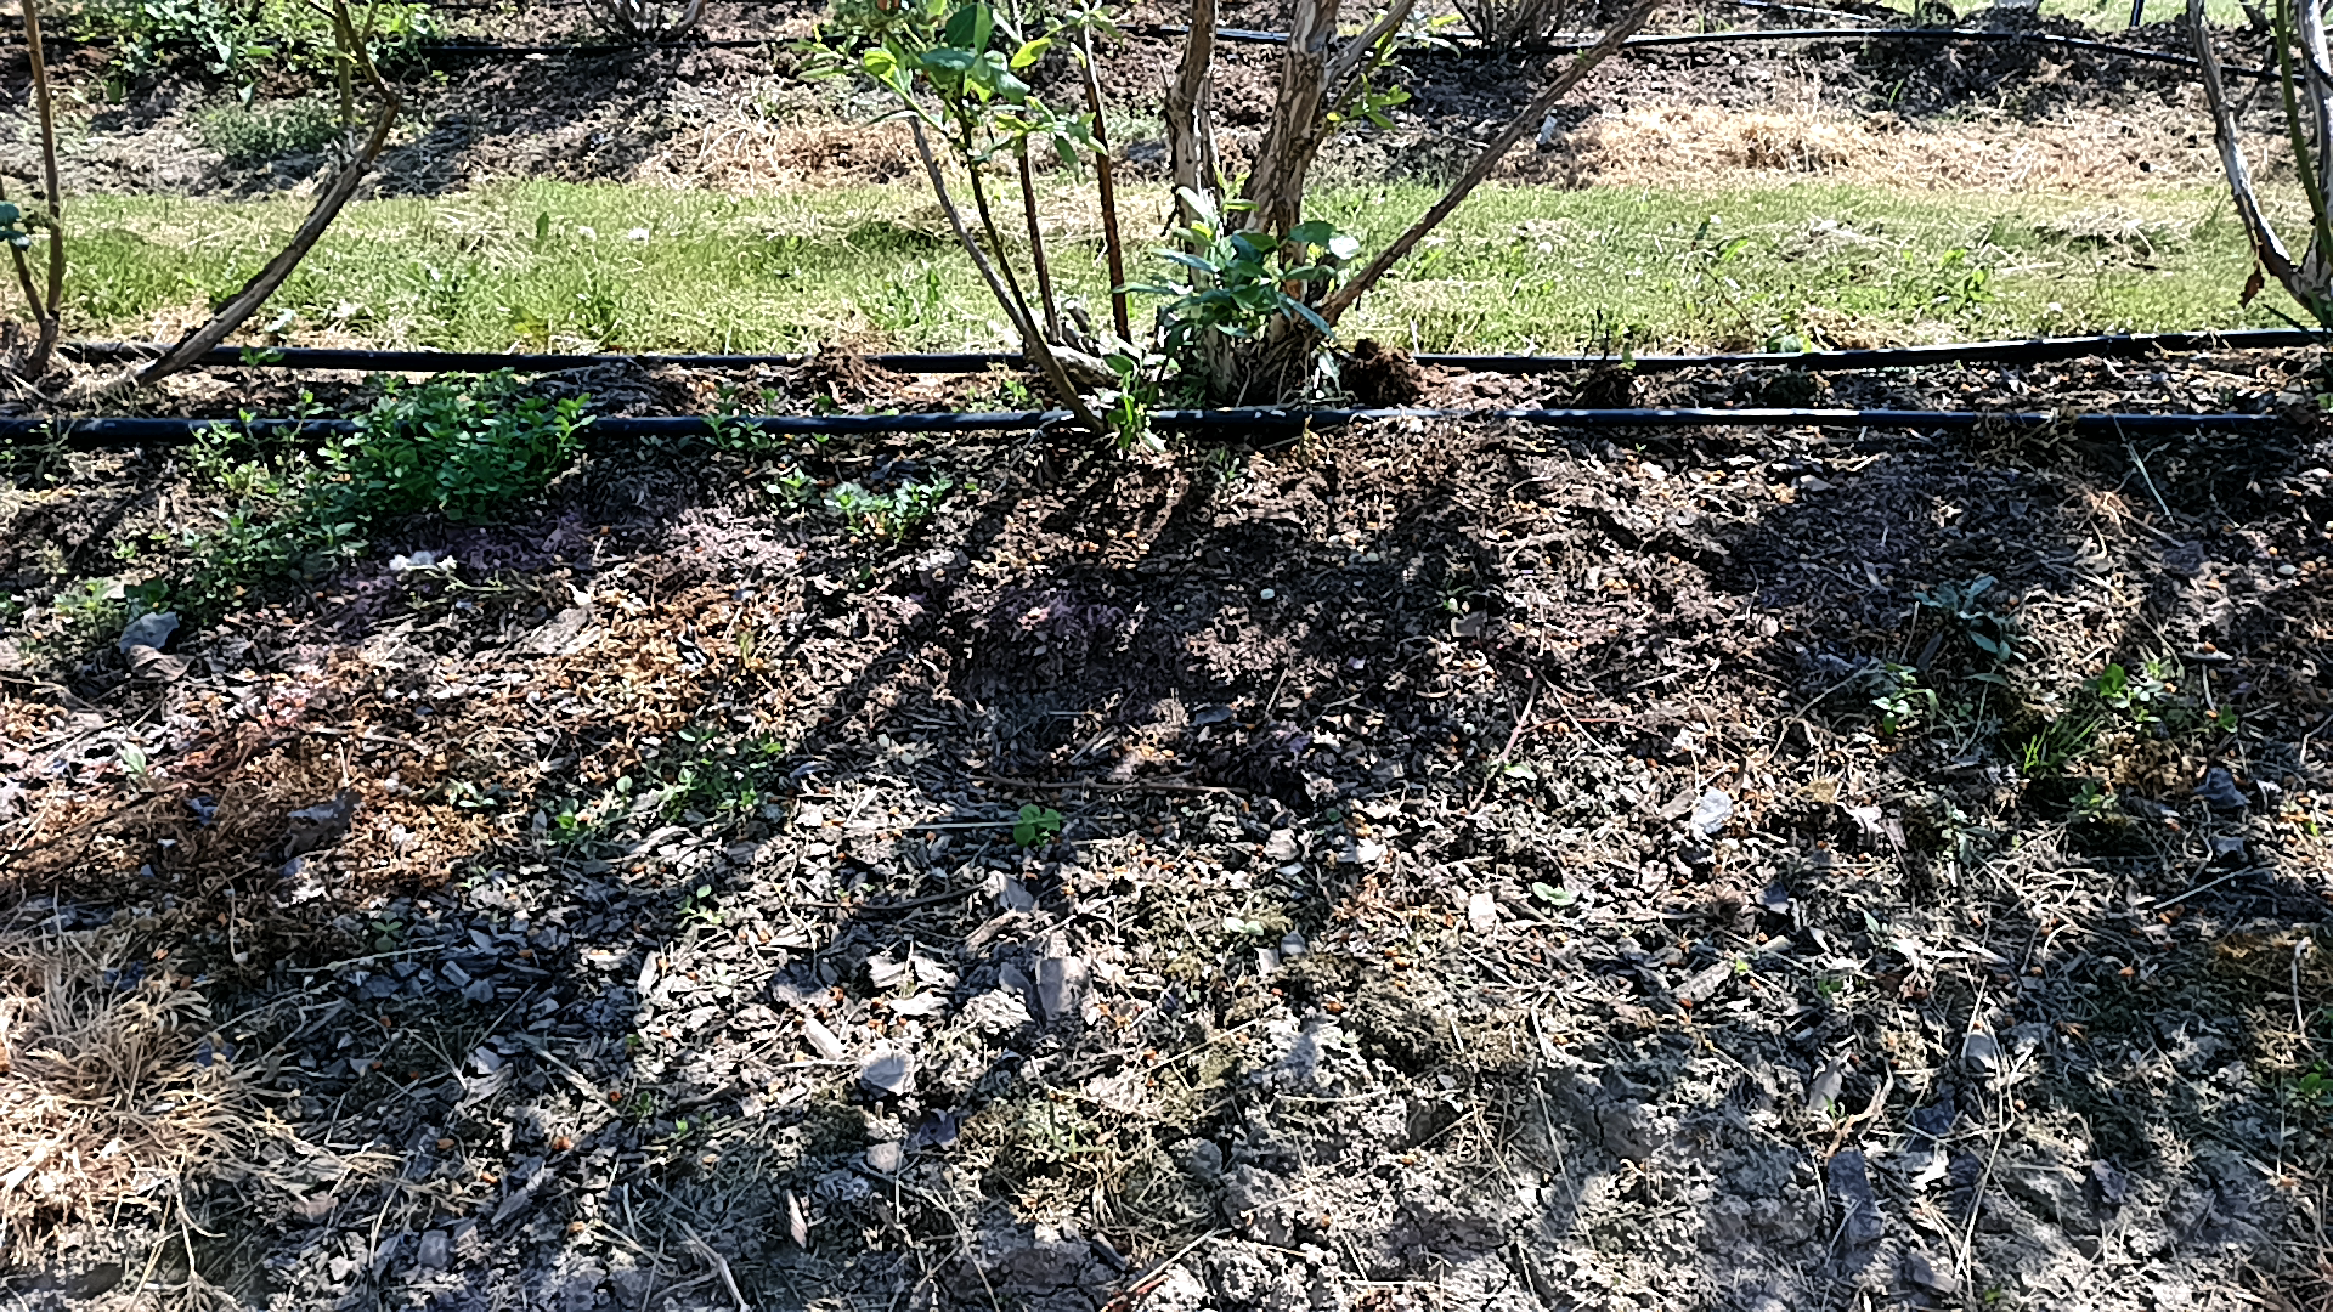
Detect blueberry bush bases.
[0,203,270,458]
[588,0,721,55]
[1454,0,1564,67]
[938,182,1437,501]
[2210,155,2331,425]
